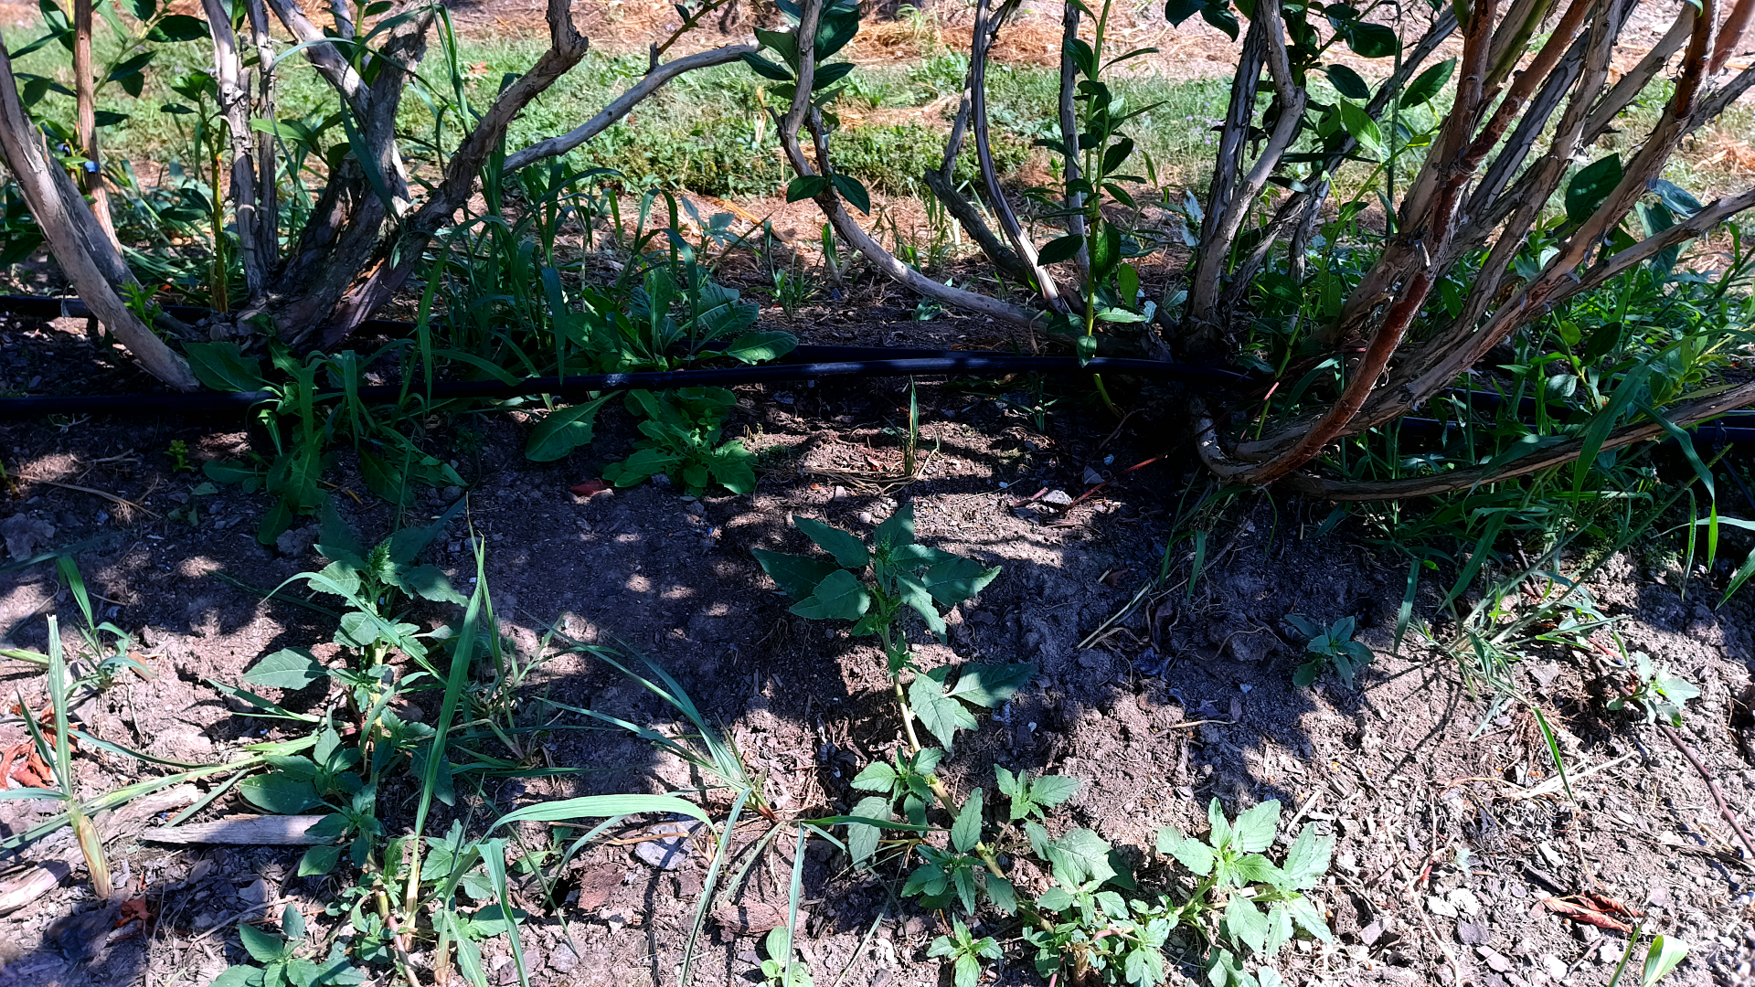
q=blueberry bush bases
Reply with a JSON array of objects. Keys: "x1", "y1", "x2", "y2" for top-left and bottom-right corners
[
  {"x1": 27, "y1": 107, "x2": 524, "y2": 506},
  {"x1": 892, "y1": 101, "x2": 1655, "y2": 602}
]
